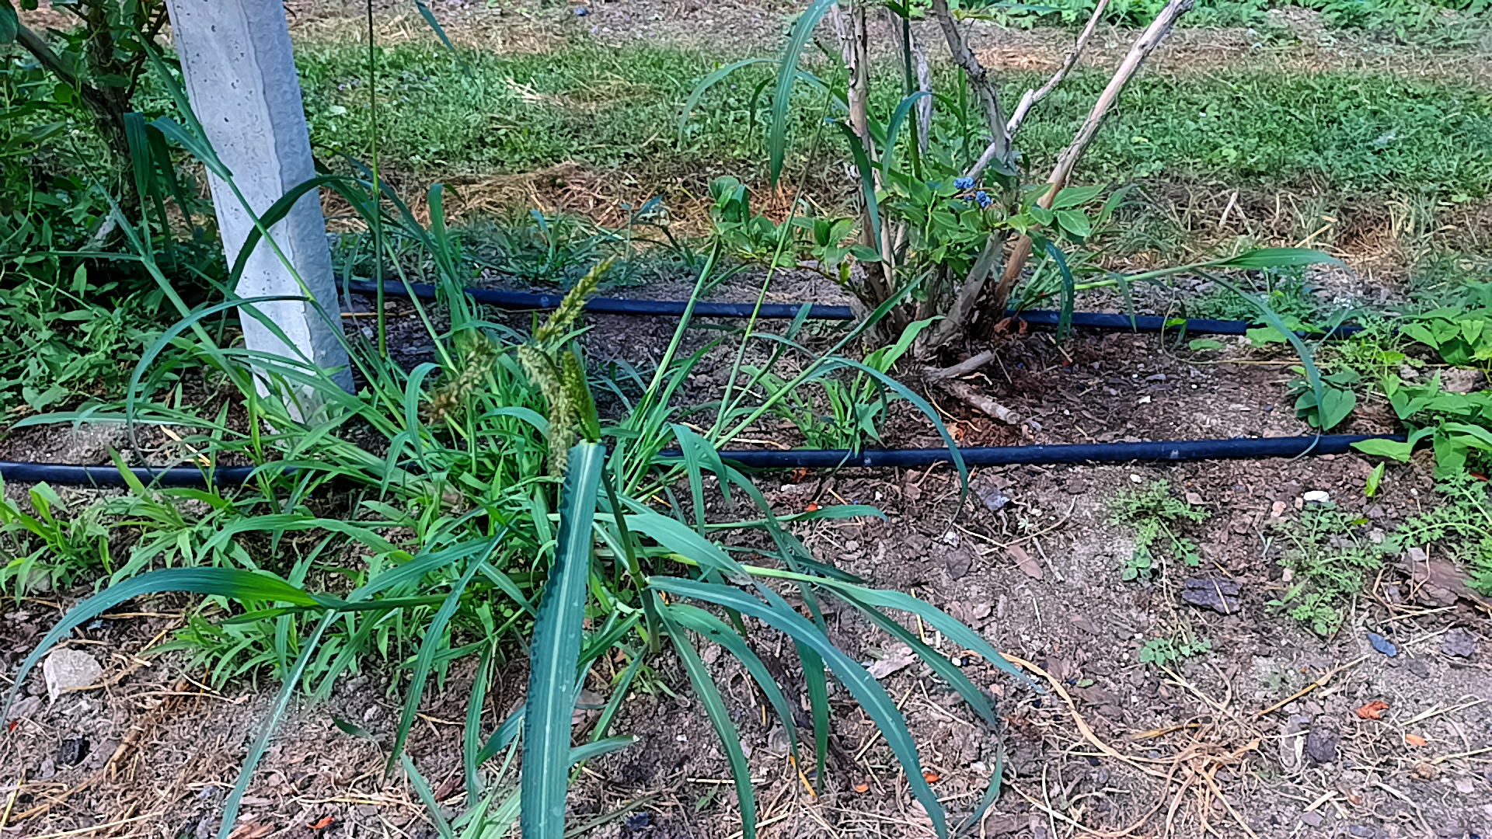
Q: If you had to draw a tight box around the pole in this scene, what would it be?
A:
[191,18,374,426]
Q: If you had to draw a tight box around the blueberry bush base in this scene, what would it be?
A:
[813,151,1102,452]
